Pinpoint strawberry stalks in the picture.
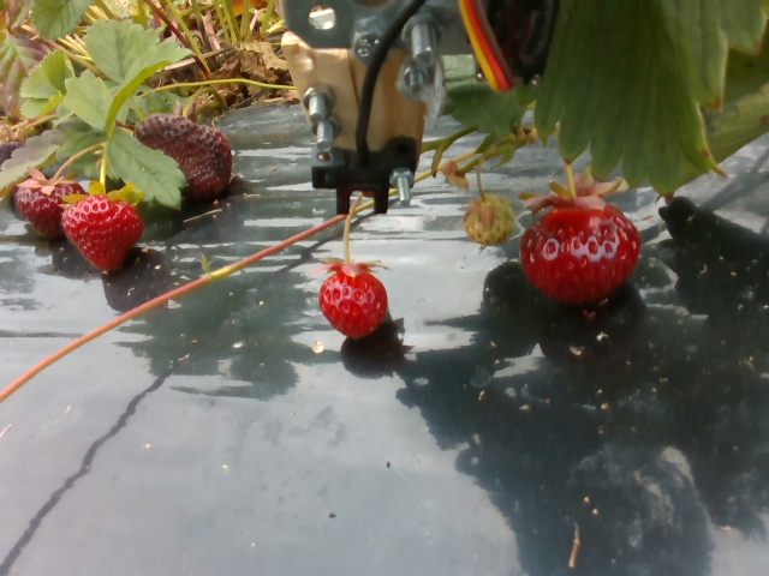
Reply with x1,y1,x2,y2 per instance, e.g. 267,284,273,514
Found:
42,137,115,187
475,155,494,210
340,190,362,287
88,107,129,207
551,154,592,216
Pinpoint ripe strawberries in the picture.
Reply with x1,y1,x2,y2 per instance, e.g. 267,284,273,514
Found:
321,264,387,338
66,192,146,271
527,198,637,302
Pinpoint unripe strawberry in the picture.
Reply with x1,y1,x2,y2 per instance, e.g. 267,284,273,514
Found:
469,202,508,237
